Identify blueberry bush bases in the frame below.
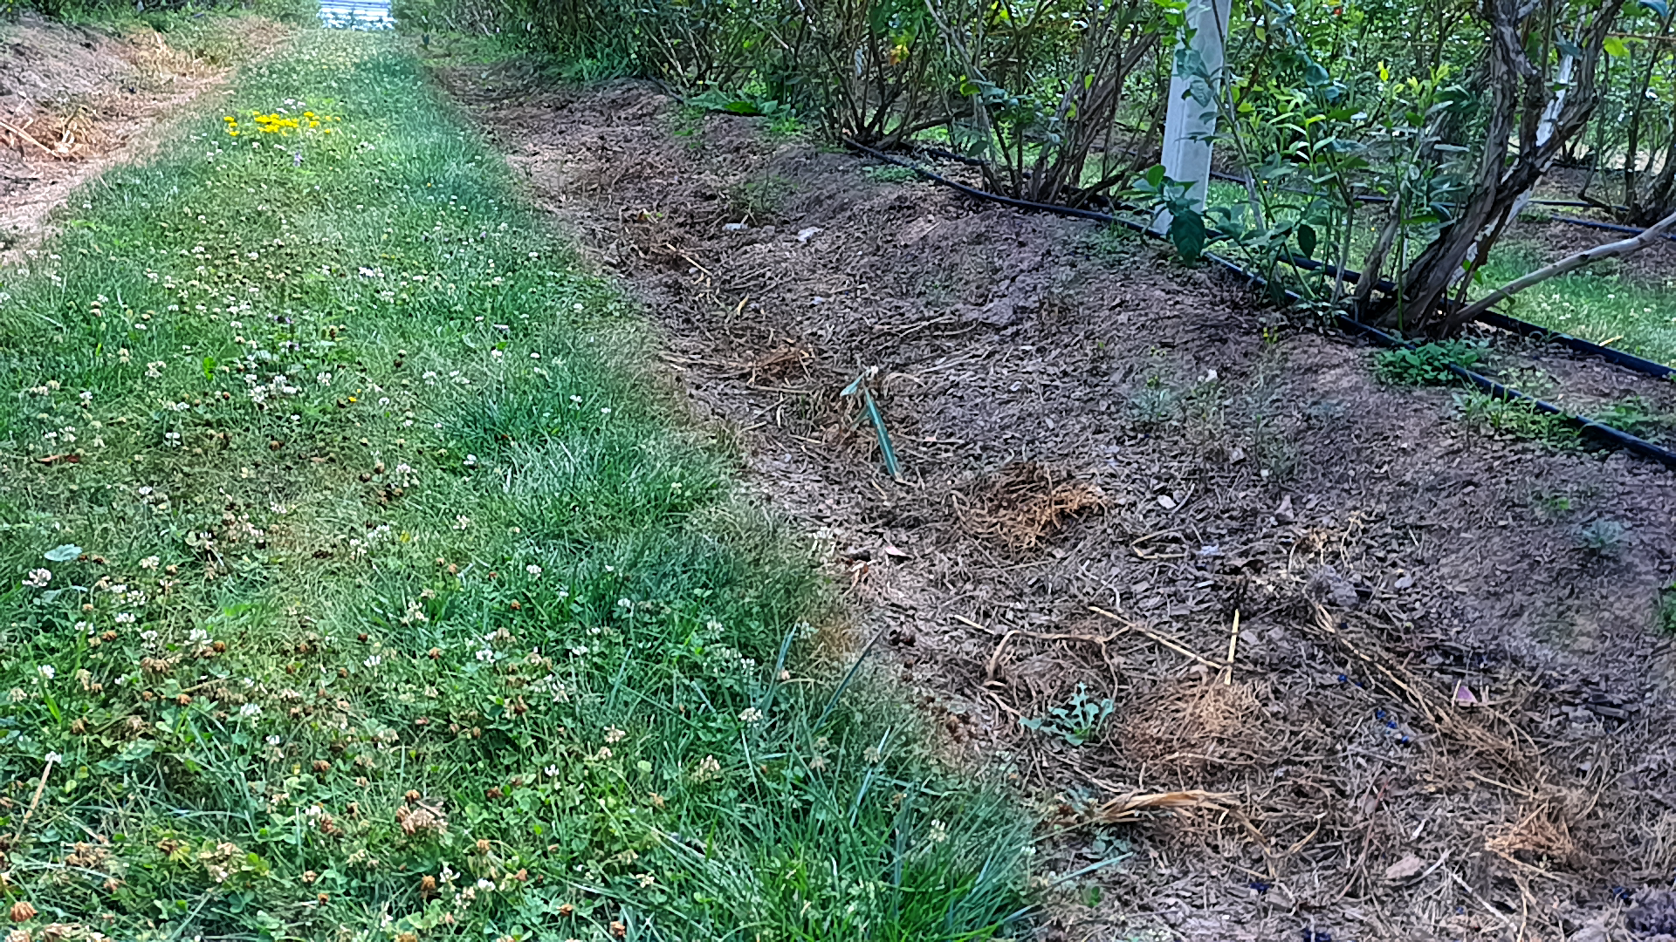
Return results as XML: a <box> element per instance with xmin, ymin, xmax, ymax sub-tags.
<box><xmin>1251</xmin><ymin>197</ymin><xmax>1528</xmax><ymax>392</ymax></box>
<box><xmin>809</xmin><ymin>86</ymin><xmax>938</xmax><ymax>203</ymax></box>
<box><xmin>961</xmin><ymin>124</ymin><xmax>1127</xmax><ymax>267</ymax></box>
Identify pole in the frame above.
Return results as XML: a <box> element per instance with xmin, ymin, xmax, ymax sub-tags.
<box><xmin>1161</xmin><ymin>1</ymin><xmax>1227</xmax><ymax>261</ymax></box>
